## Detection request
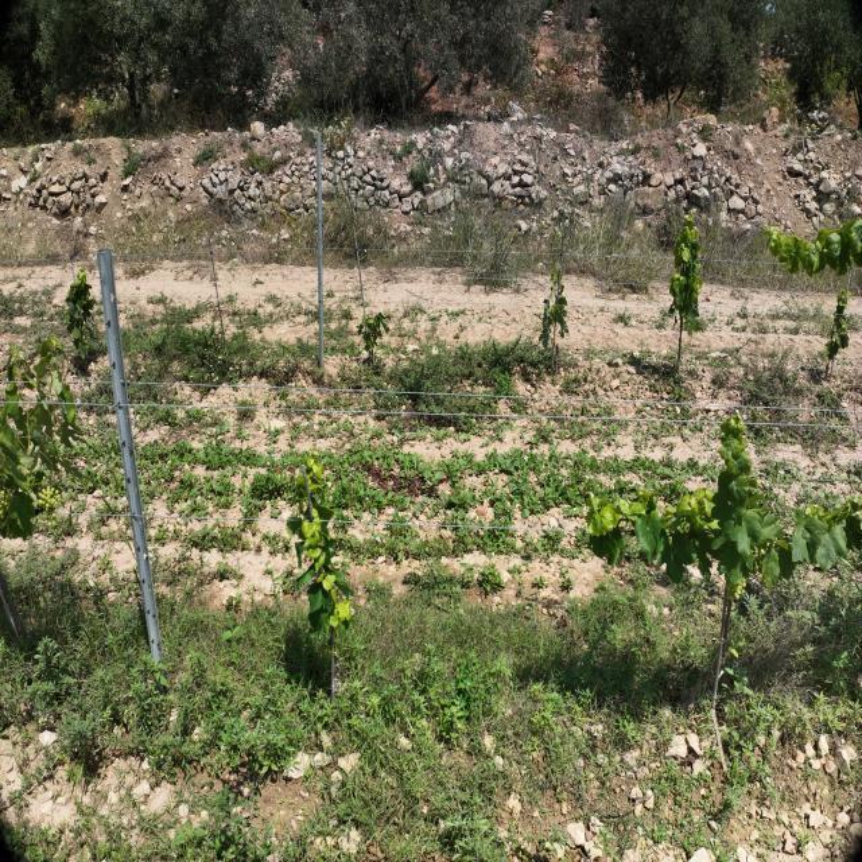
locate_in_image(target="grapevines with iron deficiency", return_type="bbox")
[277,418,364,721]
[578,404,862,743]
